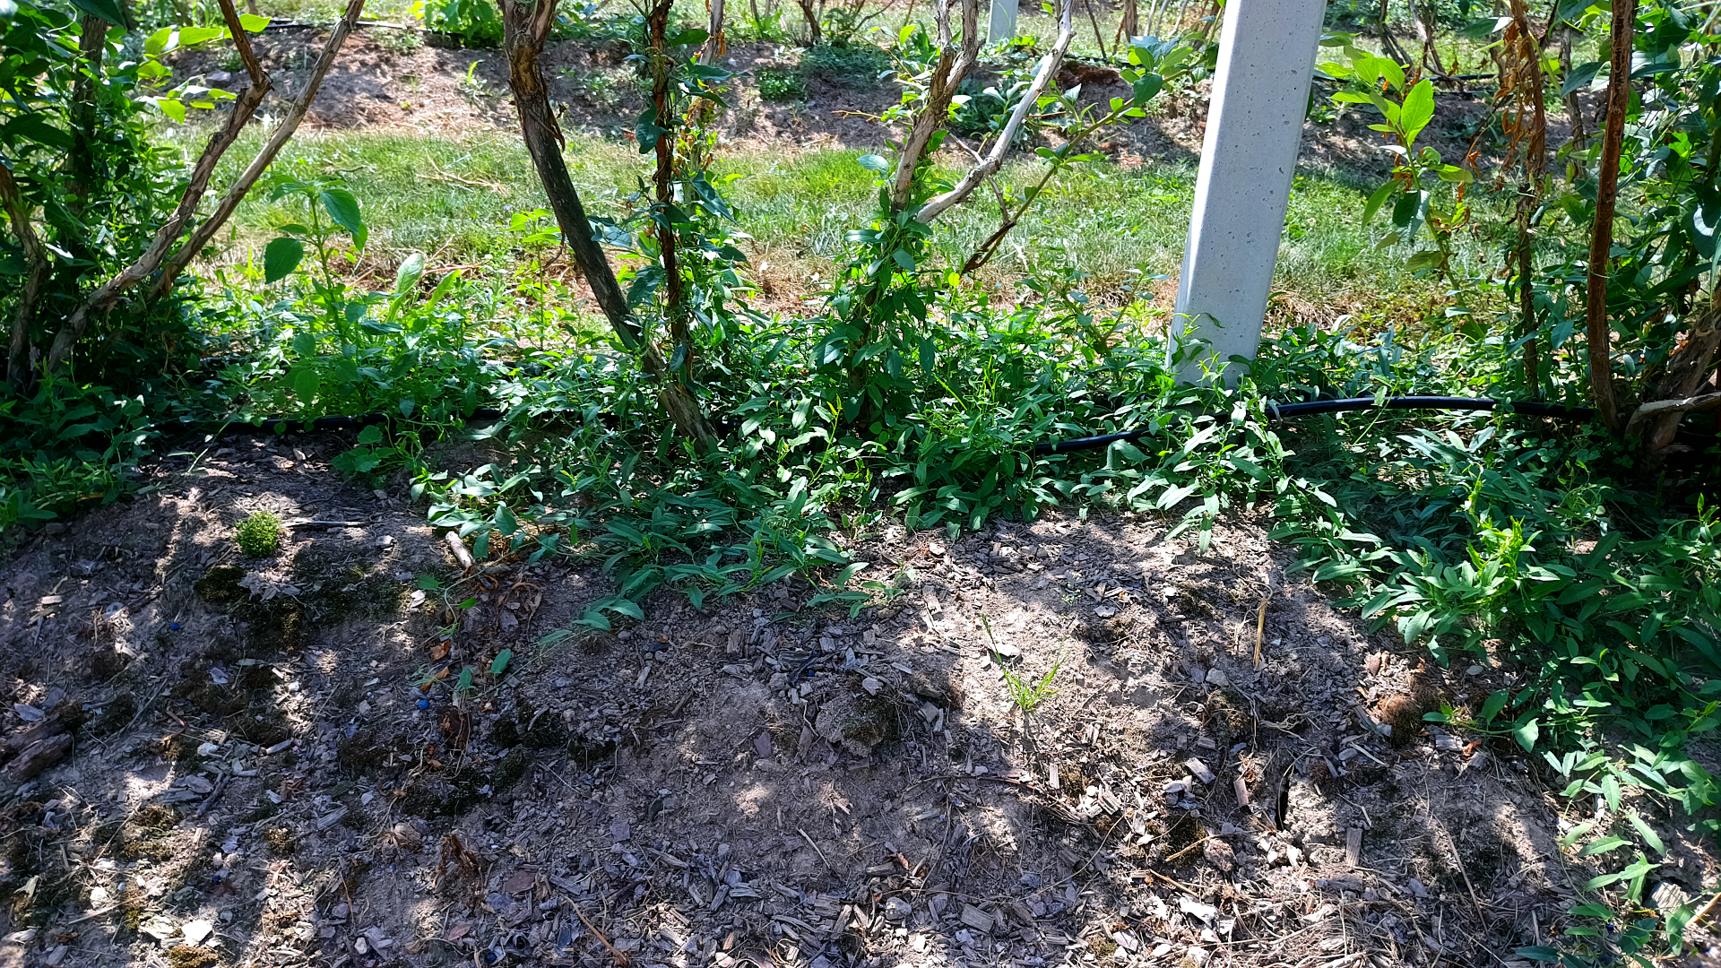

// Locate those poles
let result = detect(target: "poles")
[983,3,1020,53]
[1162,9,1330,410]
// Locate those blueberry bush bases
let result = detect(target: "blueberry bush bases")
[523,170,1009,549]
[791,6,864,60]
[1378,36,1497,117]
[1485,236,1721,570]
[0,169,270,501]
